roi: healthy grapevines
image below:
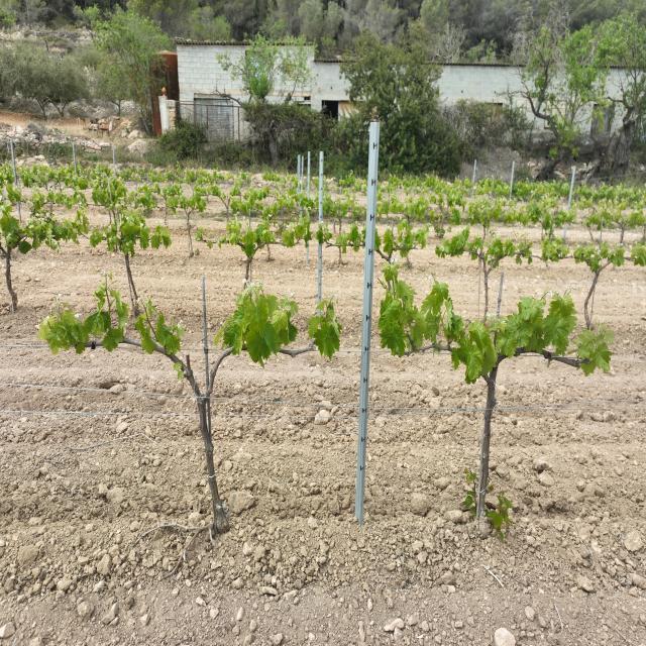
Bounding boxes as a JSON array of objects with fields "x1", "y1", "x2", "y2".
[
  {"x1": 34, "y1": 277, "x2": 348, "y2": 547},
  {"x1": 375, "y1": 275, "x2": 618, "y2": 539}
]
